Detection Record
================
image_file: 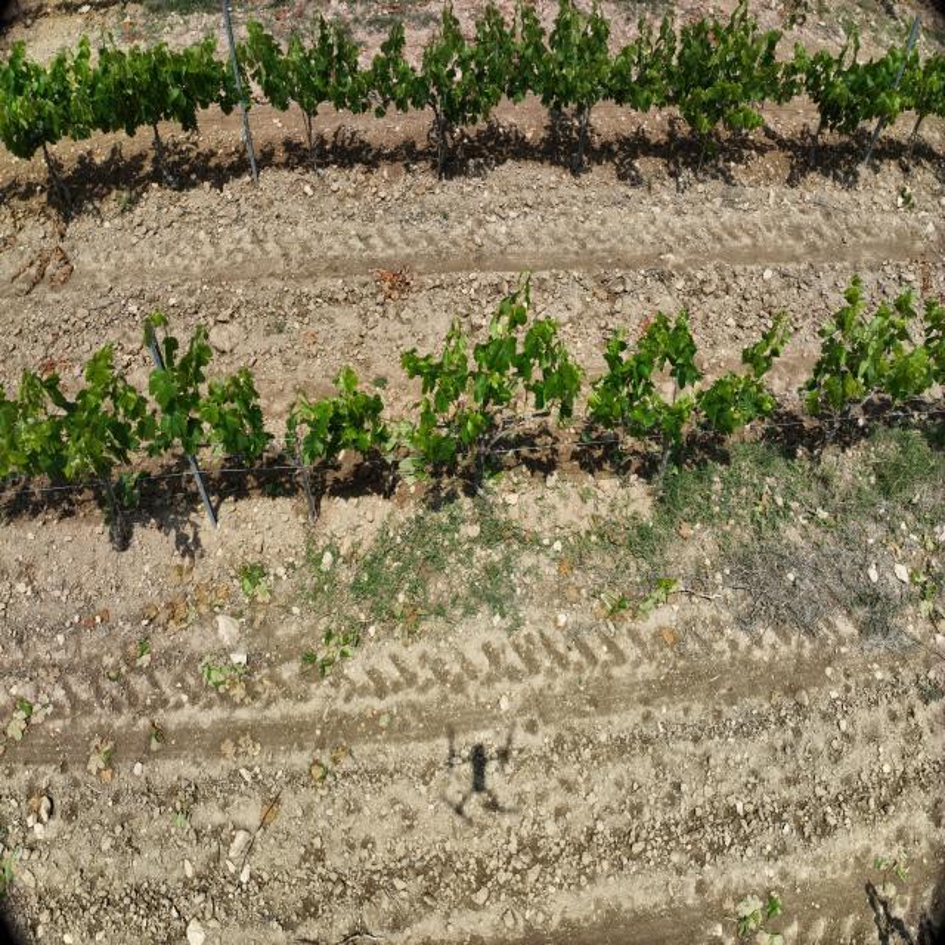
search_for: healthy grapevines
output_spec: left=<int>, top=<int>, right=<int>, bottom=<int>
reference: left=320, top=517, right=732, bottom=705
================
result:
left=392, top=292, right=583, bottom=523
left=198, top=368, right=410, bottom=538
left=586, top=303, right=793, bottom=505
left=0, top=326, right=202, bottom=568
left=786, top=273, right=944, bottom=443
